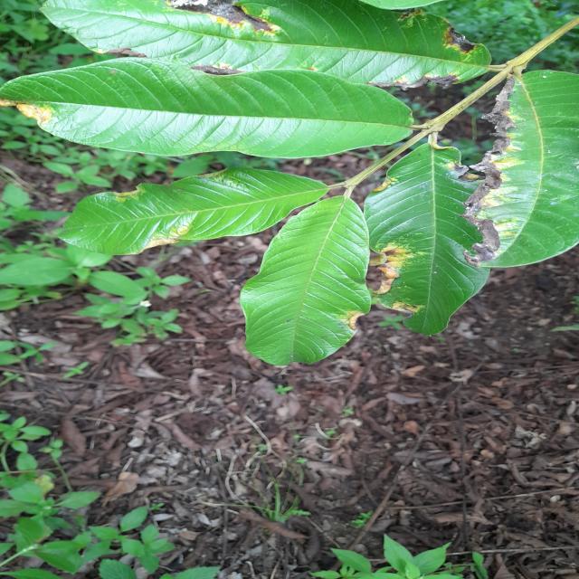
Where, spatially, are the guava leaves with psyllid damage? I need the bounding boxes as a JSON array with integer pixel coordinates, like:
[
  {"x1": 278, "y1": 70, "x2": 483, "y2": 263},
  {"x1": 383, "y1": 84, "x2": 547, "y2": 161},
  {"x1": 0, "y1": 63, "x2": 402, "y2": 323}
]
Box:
[
  {"x1": 228, "y1": 188, "x2": 374, "y2": 389},
  {"x1": 3, "y1": 53, "x2": 434, "y2": 165},
  {"x1": 50, "y1": 166, "x2": 333, "y2": 273}
]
